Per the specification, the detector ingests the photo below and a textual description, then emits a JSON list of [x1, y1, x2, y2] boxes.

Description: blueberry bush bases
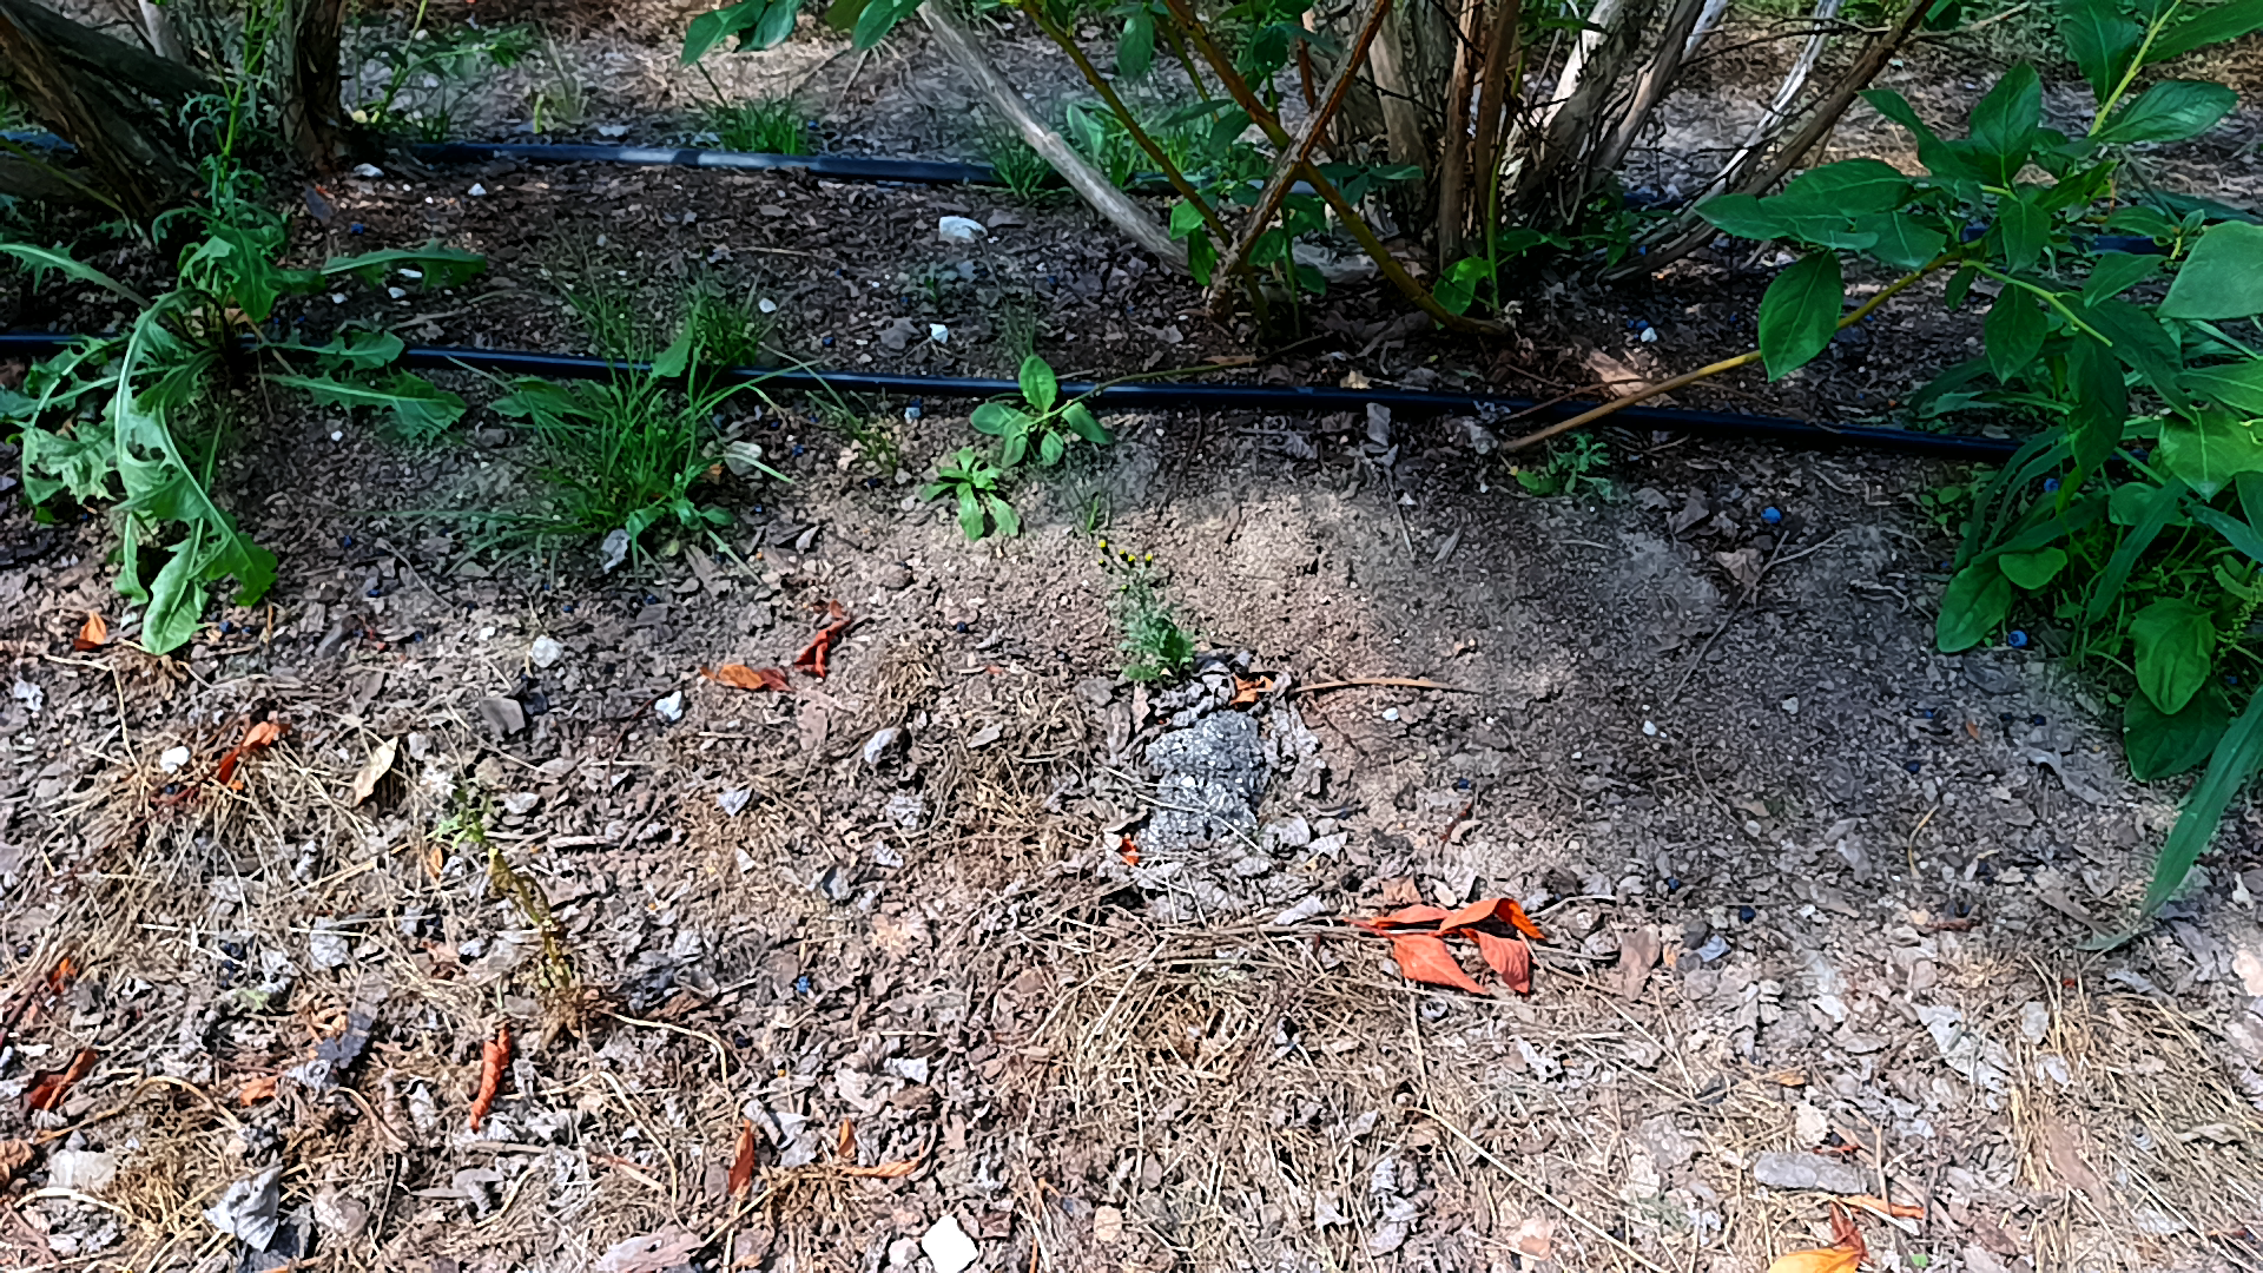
[[1, 6, 347, 444], [1241, 32, 1869, 448]]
